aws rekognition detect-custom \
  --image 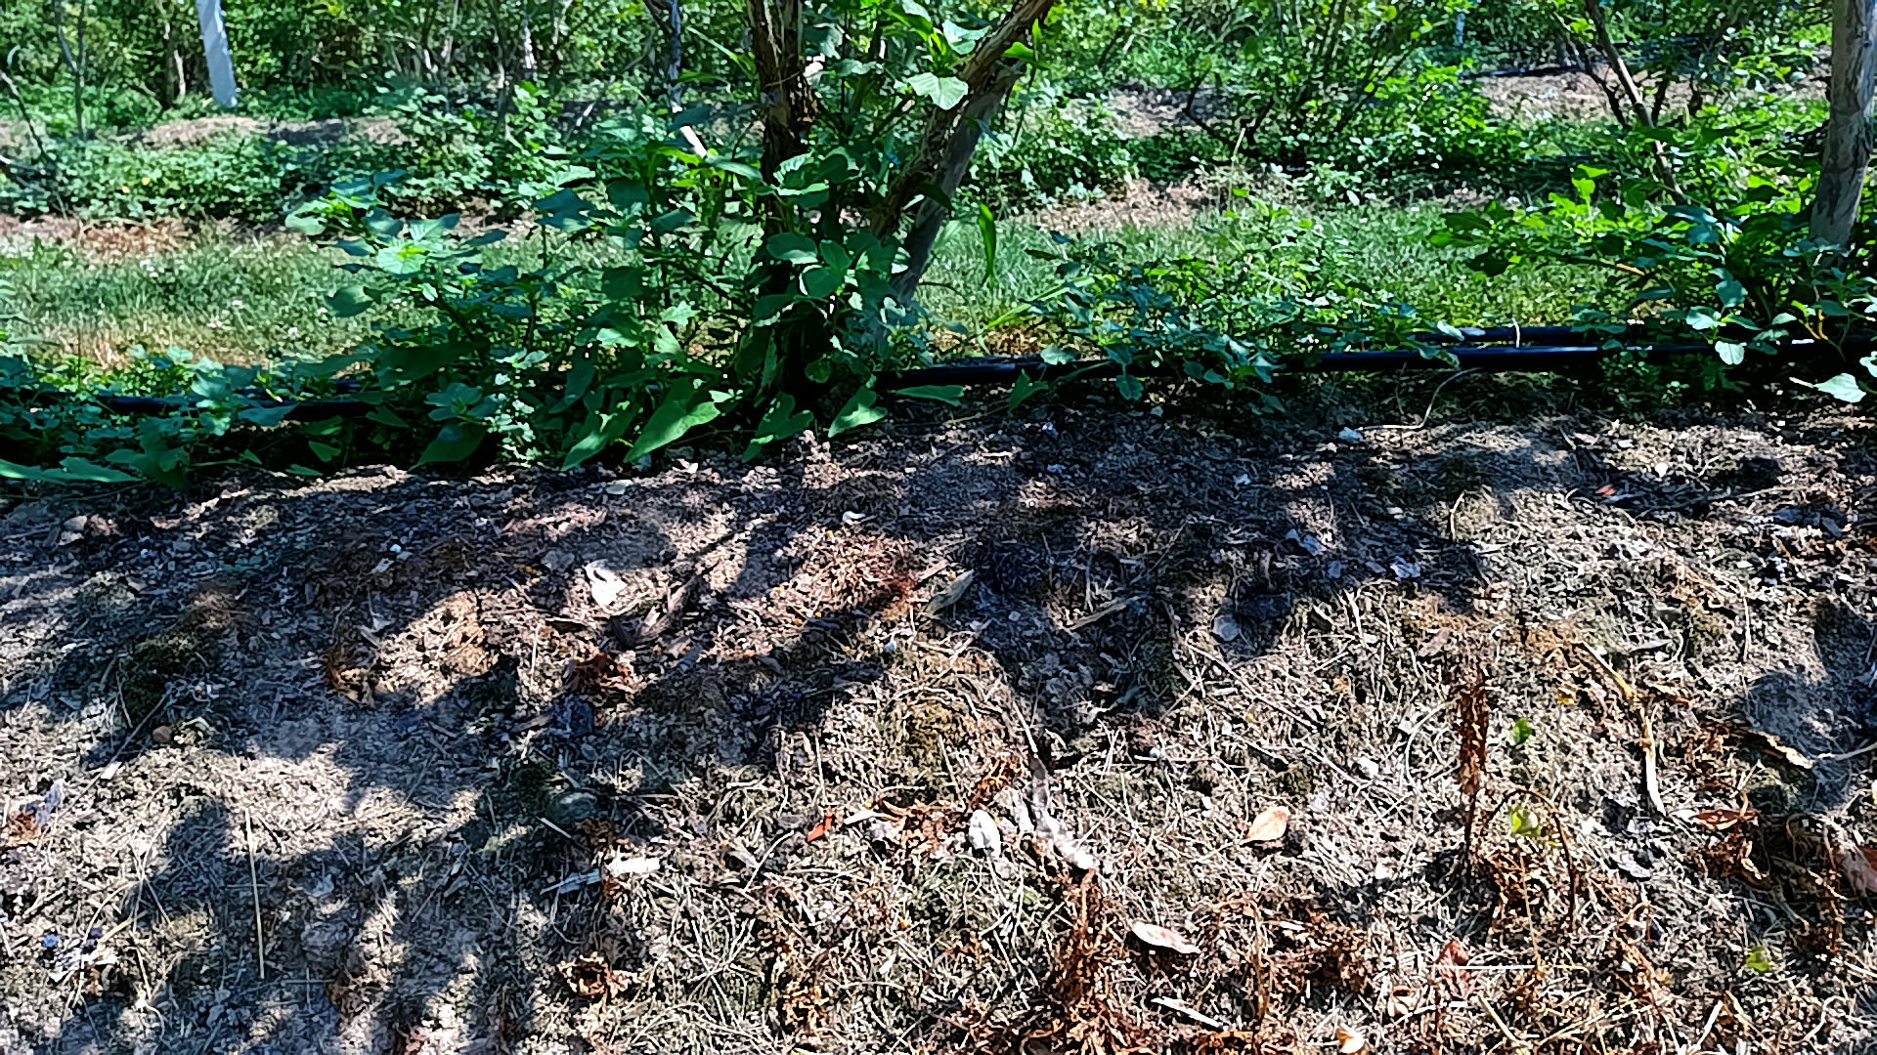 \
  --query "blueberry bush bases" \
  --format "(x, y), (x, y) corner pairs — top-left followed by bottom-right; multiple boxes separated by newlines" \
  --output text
(629, 153), (993, 493)
(1572, 112), (1875, 417)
